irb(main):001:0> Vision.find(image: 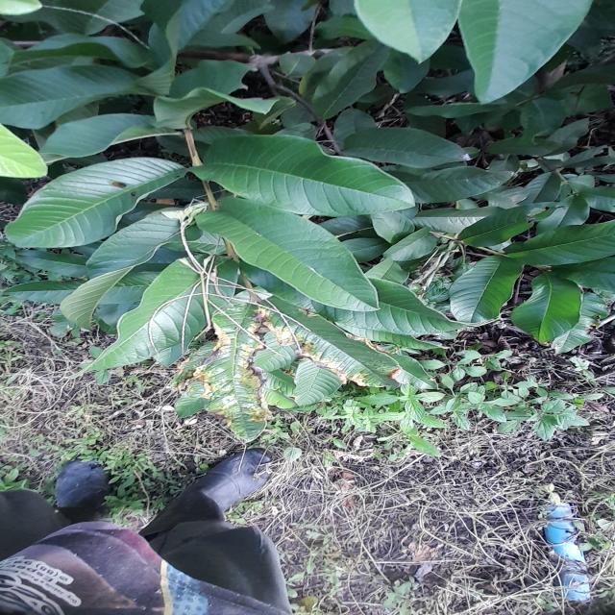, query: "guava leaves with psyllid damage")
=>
[239,307,434,395]
[204,295,272,449]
